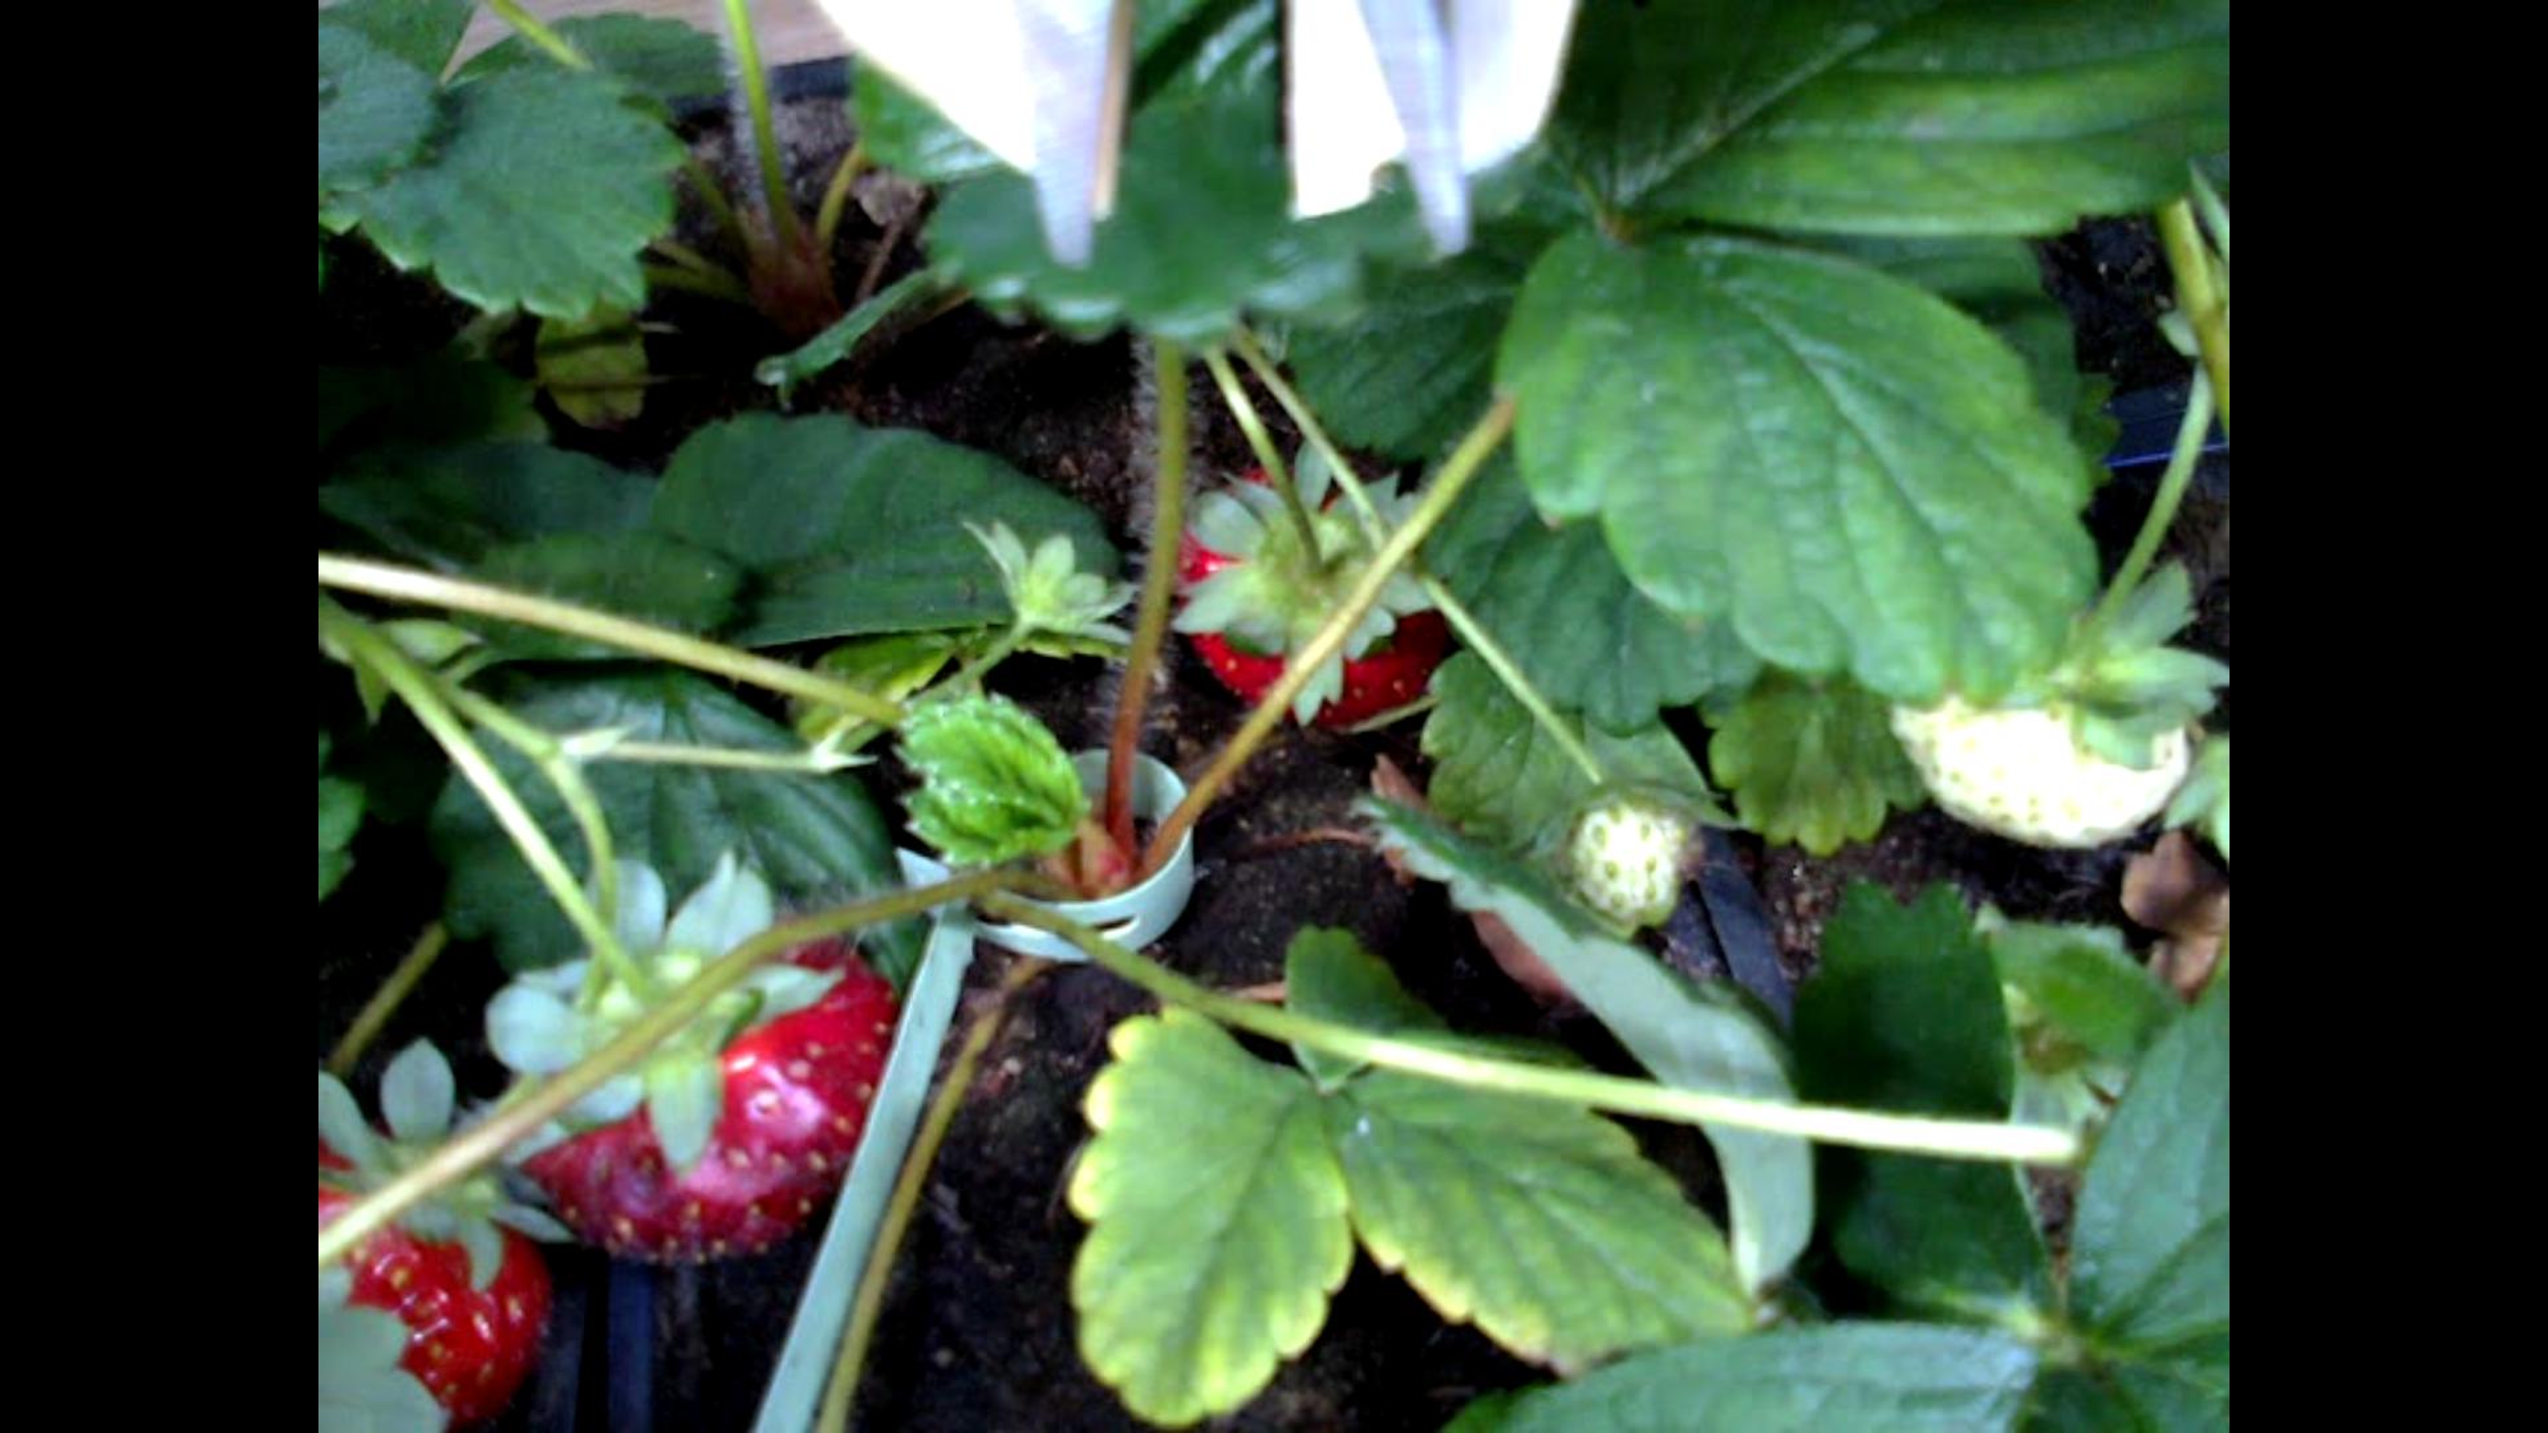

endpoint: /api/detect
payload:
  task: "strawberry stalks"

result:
[2043,445,2200,669]
[1214,358,1362,640]
[354,673,783,1047]
[1527,699,1639,812]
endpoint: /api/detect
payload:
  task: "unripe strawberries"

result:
[1555,785,1719,933]
[1875,581,2216,856]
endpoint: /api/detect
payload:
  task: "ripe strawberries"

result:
[319,1064,573,1401]
[514,839,871,1278]
[1151,462,1468,732]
